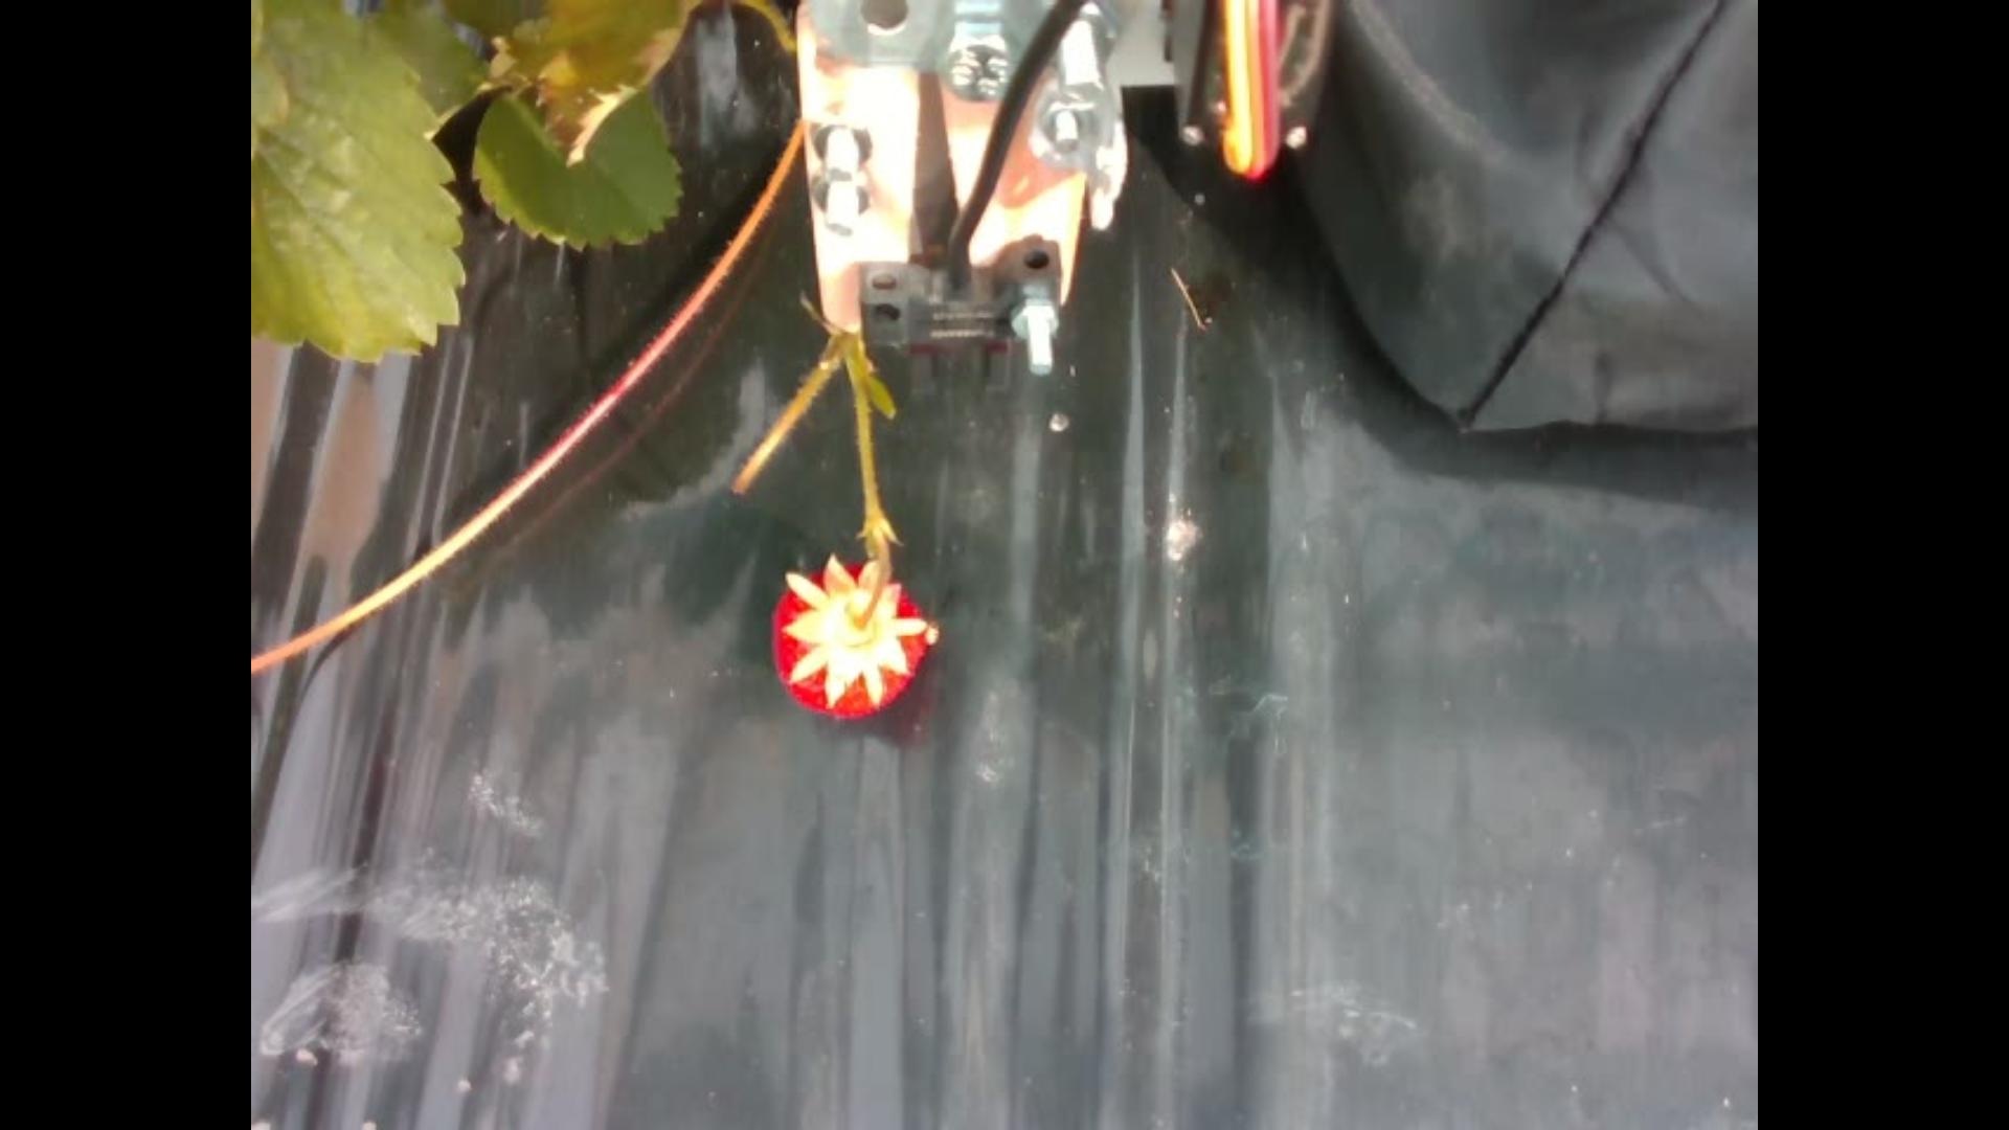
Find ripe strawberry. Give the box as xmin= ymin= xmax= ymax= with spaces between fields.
xmin=773 ymin=558 xmax=940 ymax=726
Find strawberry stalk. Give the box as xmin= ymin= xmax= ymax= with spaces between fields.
xmin=850 ymin=393 xmax=895 ymax=646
